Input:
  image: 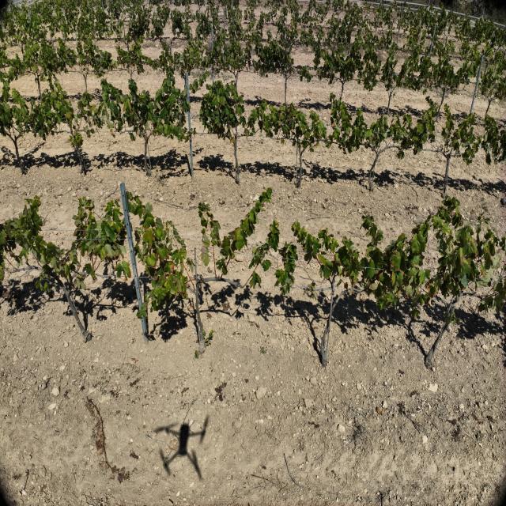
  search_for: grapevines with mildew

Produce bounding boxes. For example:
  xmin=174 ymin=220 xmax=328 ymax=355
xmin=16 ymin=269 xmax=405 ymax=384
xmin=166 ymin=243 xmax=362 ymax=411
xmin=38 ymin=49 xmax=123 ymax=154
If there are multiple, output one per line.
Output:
xmin=0 ymin=192 xmax=134 ymax=351
xmin=273 ymin=210 xmax=415 ymax=374
xmin=126 ymin=185 xmax=281 ymax=363
xmin=405 ymin=193 xmax=506 ymax=379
